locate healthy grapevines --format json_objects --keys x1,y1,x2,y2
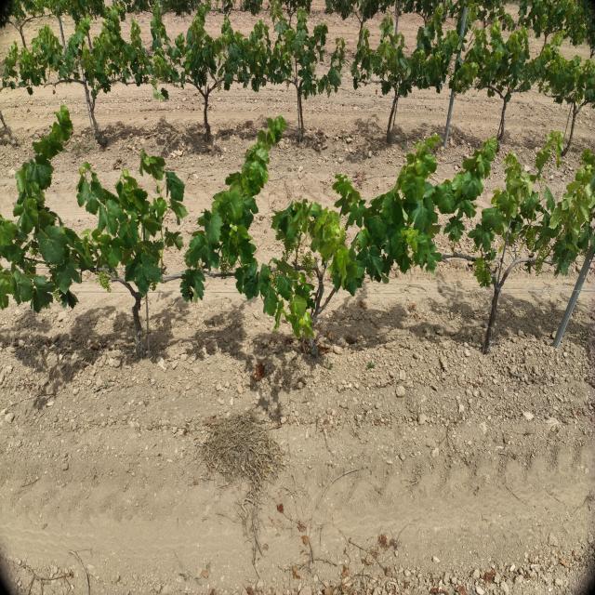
[
  {"x1": 222, "y1": 110, "x2": 425, "y2": 380},
  {"x1": 397, "y1": 129, "x2": 595, "y2": 361},
  {"x1": 0, "y1": 121, "x2": 233, "y2": 369}
]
